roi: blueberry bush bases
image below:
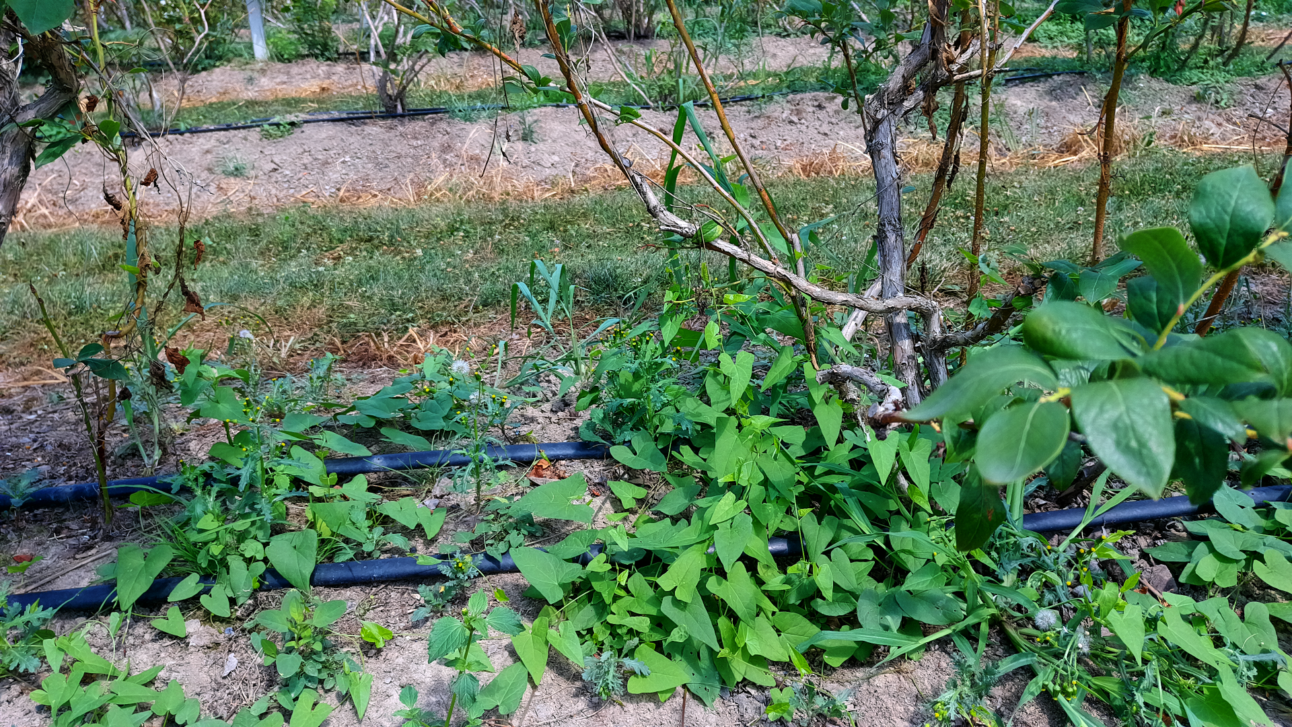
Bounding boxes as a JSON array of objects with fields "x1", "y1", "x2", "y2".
[
  {"x1": 150, "y1": 36, "x2": 220, "y2": 82},
  {"x1": 608, "y1": 13, "x2": 661, "y2": 51},
  {"x1": 349, "y1": 66, "x2": 441, "y2": 136},
  {"x1": 621, "y1": 66, "x2": 725, "y2": 122},
  {"x1": 701, "y1": 207, "x2": 1076, "y2": 596}
]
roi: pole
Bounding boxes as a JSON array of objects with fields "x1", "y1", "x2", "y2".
[{"x1": 246, "y1": 0, "x2": 268, "y2": 67}]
